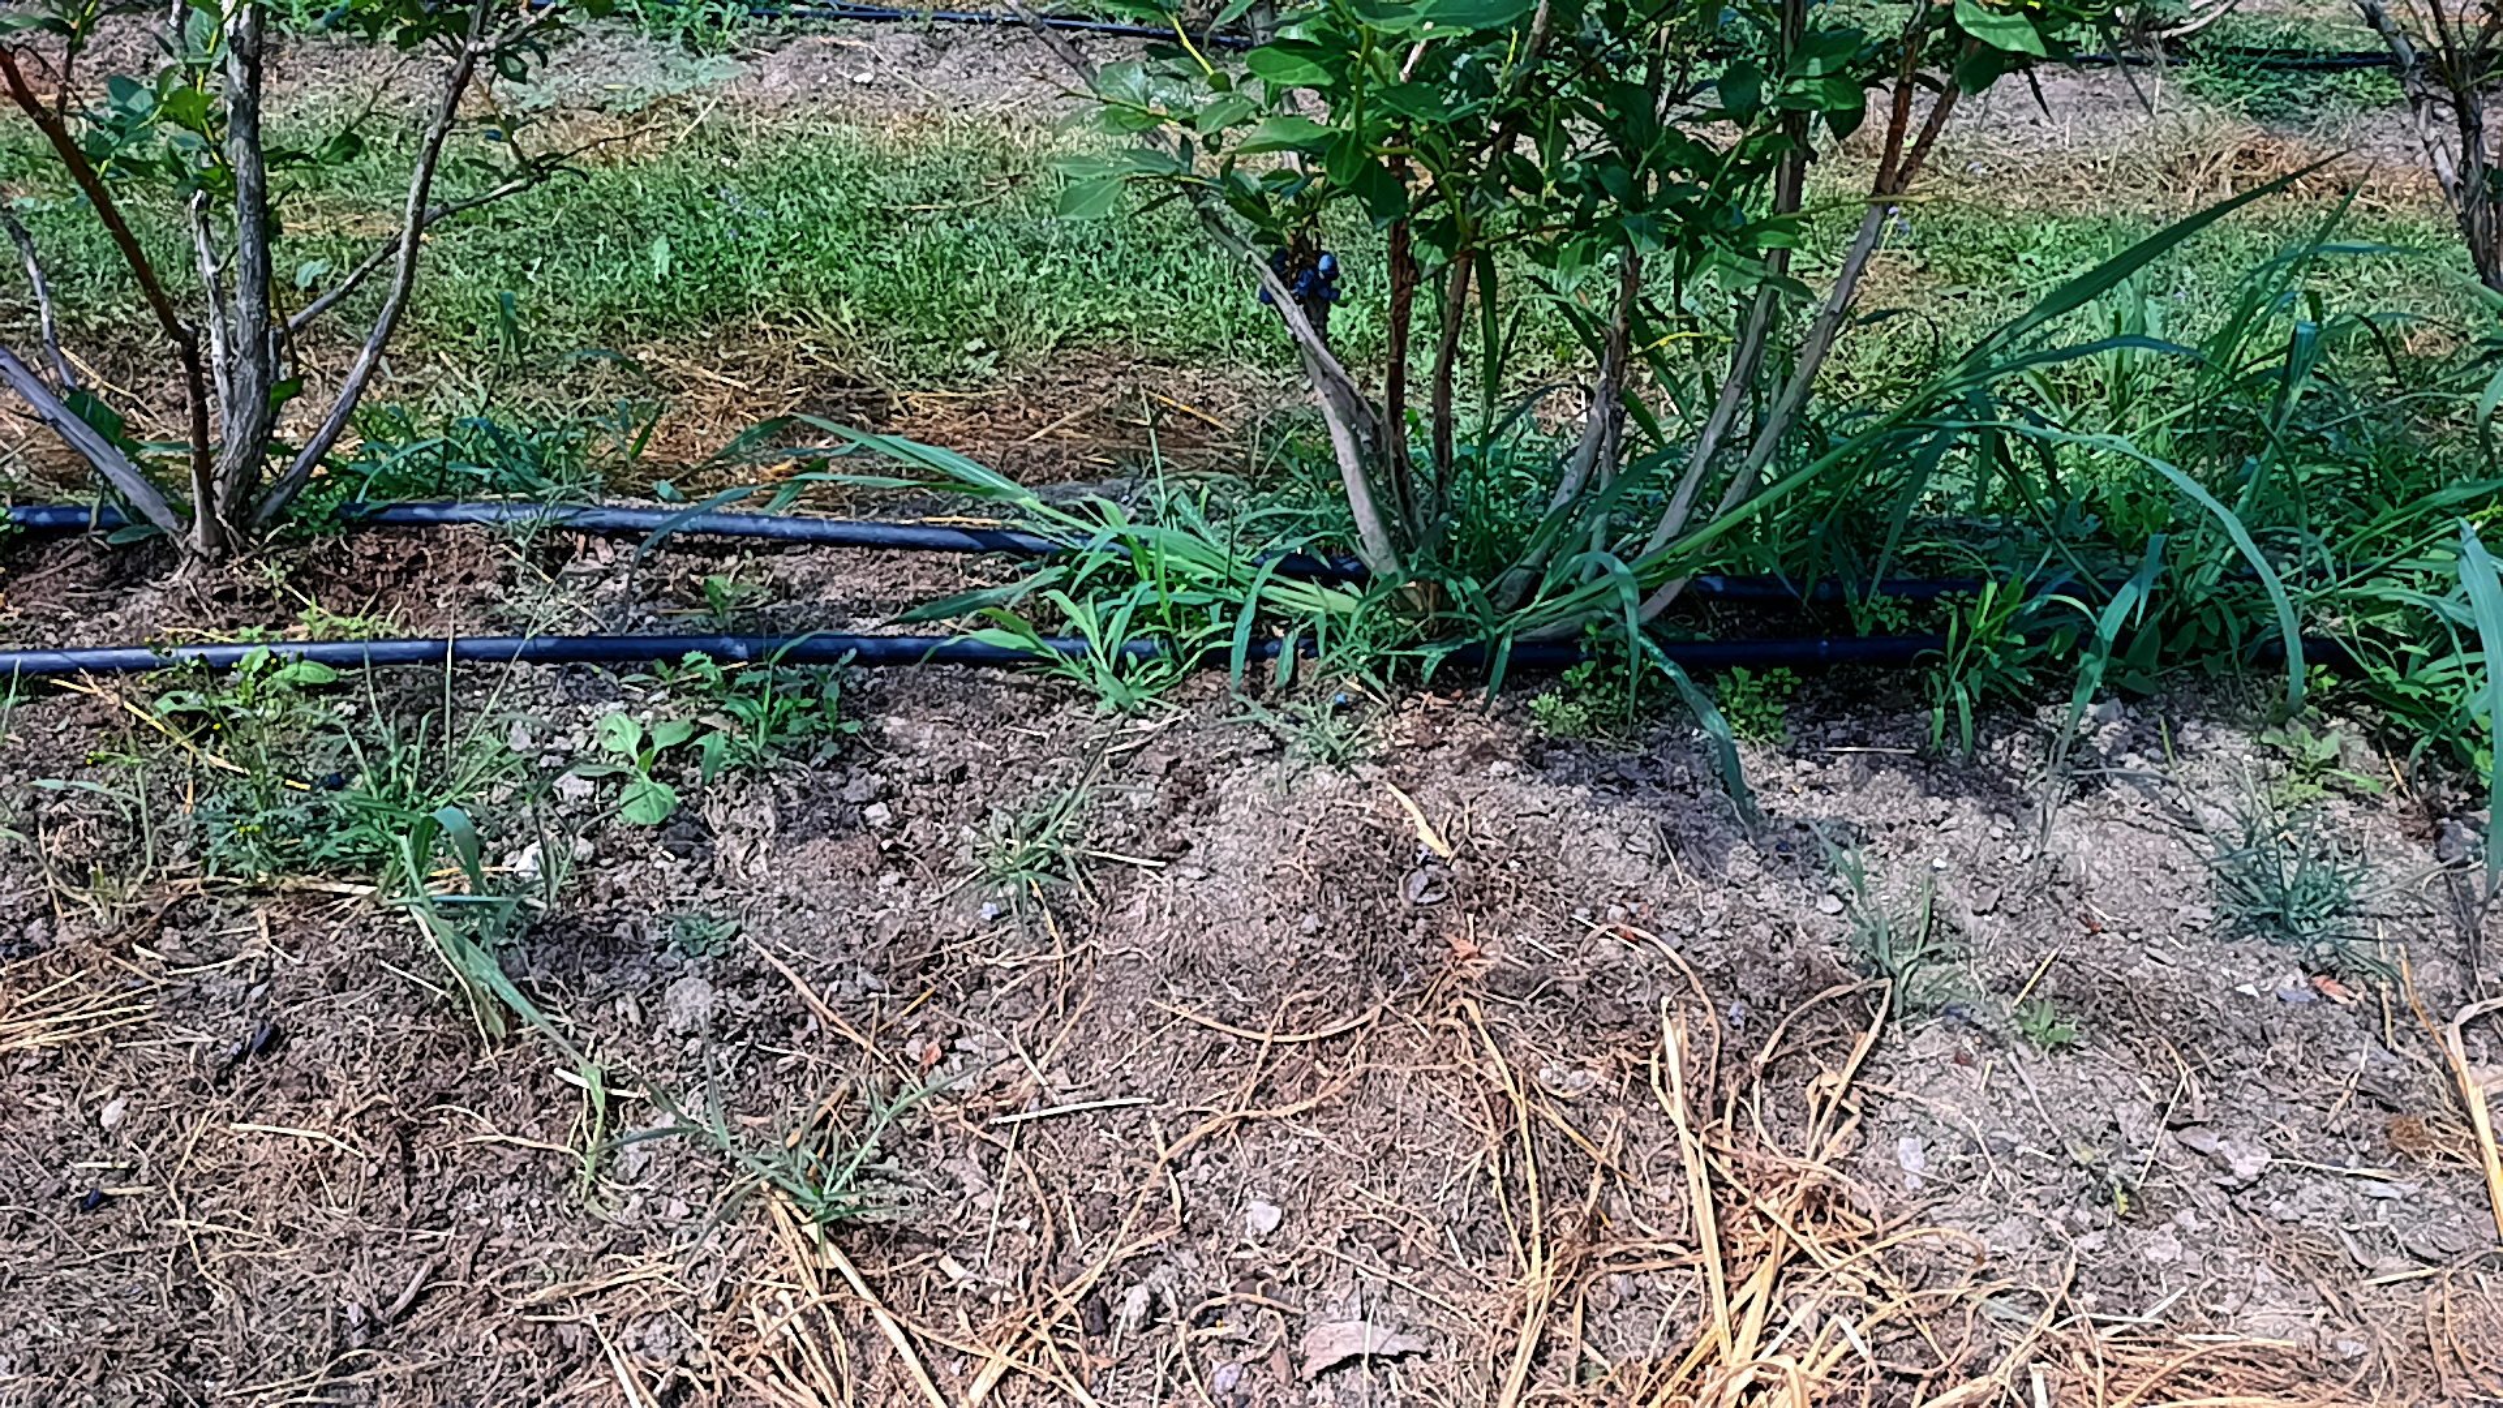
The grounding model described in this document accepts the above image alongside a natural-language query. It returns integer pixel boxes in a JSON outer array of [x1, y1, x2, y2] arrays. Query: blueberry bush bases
[[0, 304, 435, 654], [1250, 334, 1846, 737]]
